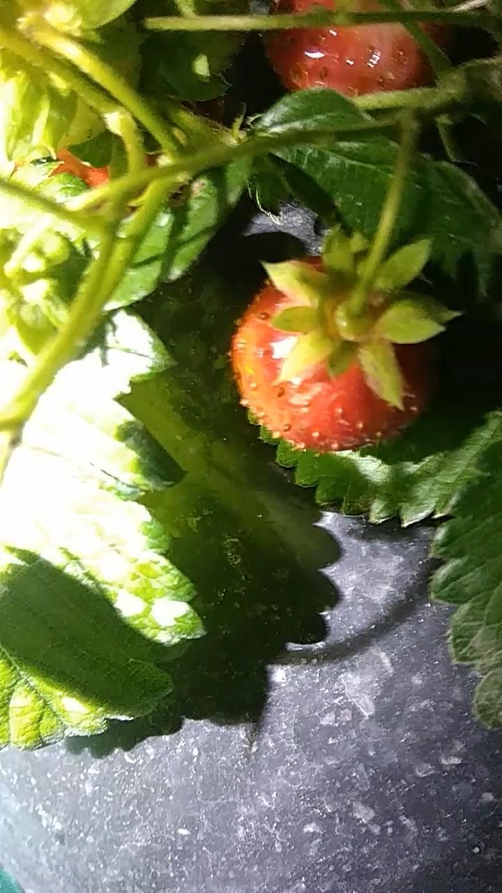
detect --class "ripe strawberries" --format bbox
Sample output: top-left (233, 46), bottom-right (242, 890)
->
top-left (232, 246), bottom-right (442, 460)
top-left (272, 0), bottom-right (430, 98)
top-left (40, 97), bottom-right (192, 234)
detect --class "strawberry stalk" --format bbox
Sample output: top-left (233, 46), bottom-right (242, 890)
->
top-left (331, 118), bottom-right (431, 342)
